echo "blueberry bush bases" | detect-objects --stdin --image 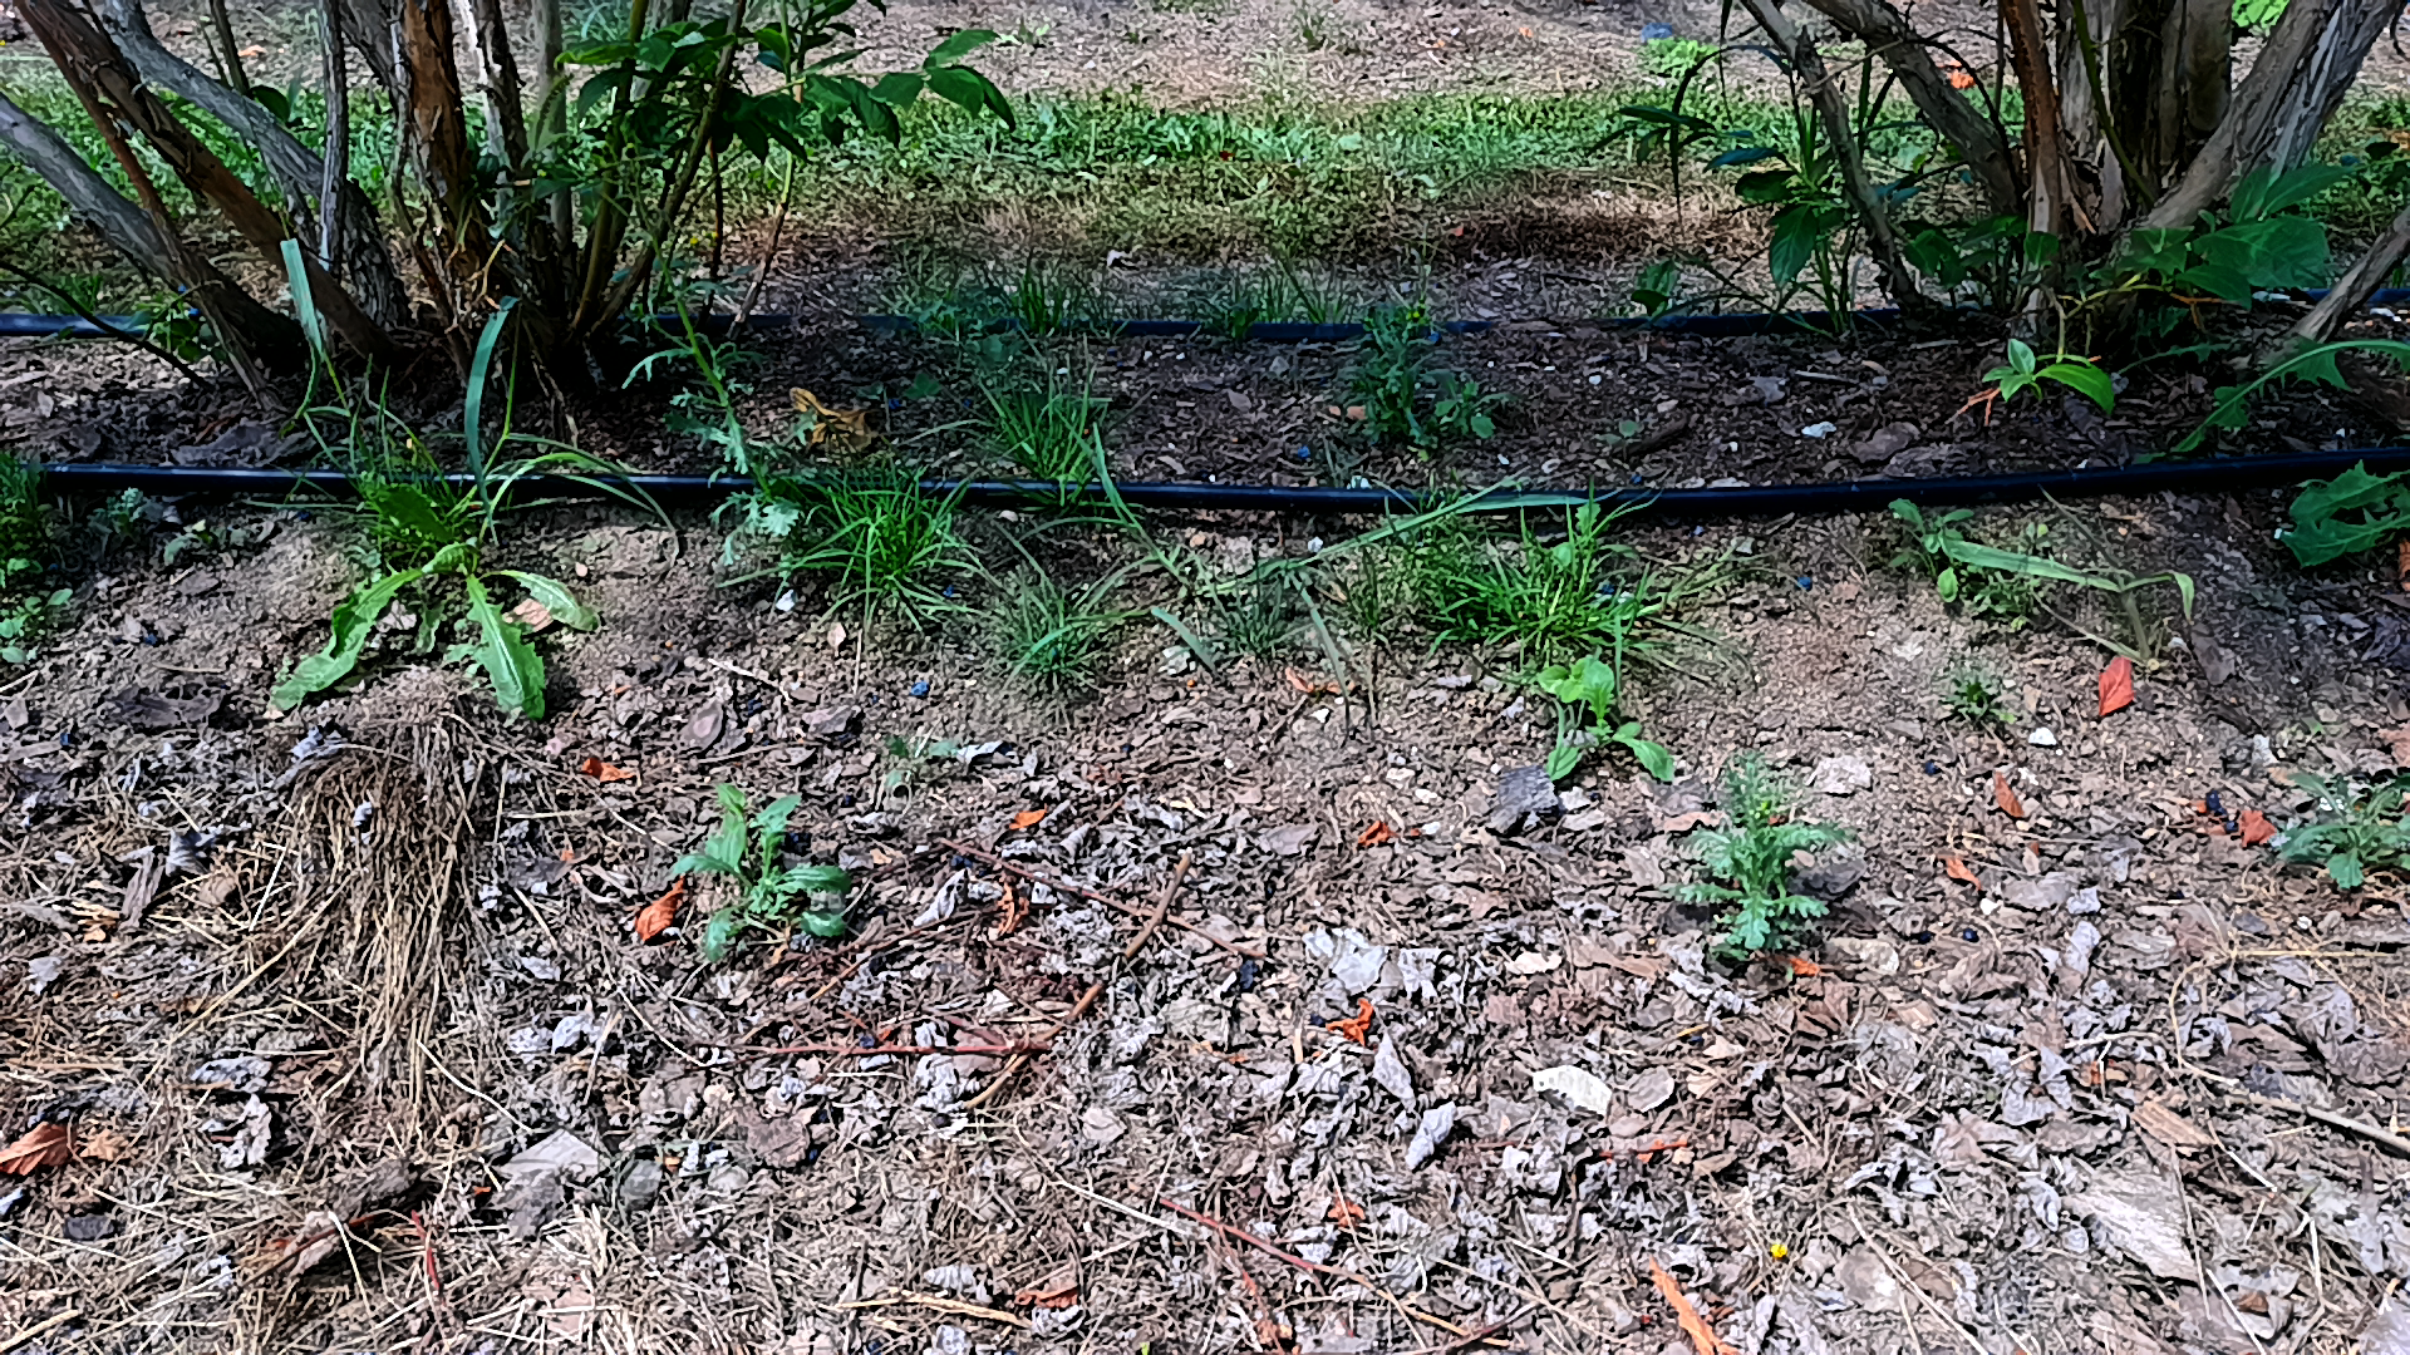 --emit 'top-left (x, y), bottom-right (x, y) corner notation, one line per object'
(77, 119), (756, 552)
(1809, 50), (2392, 478)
